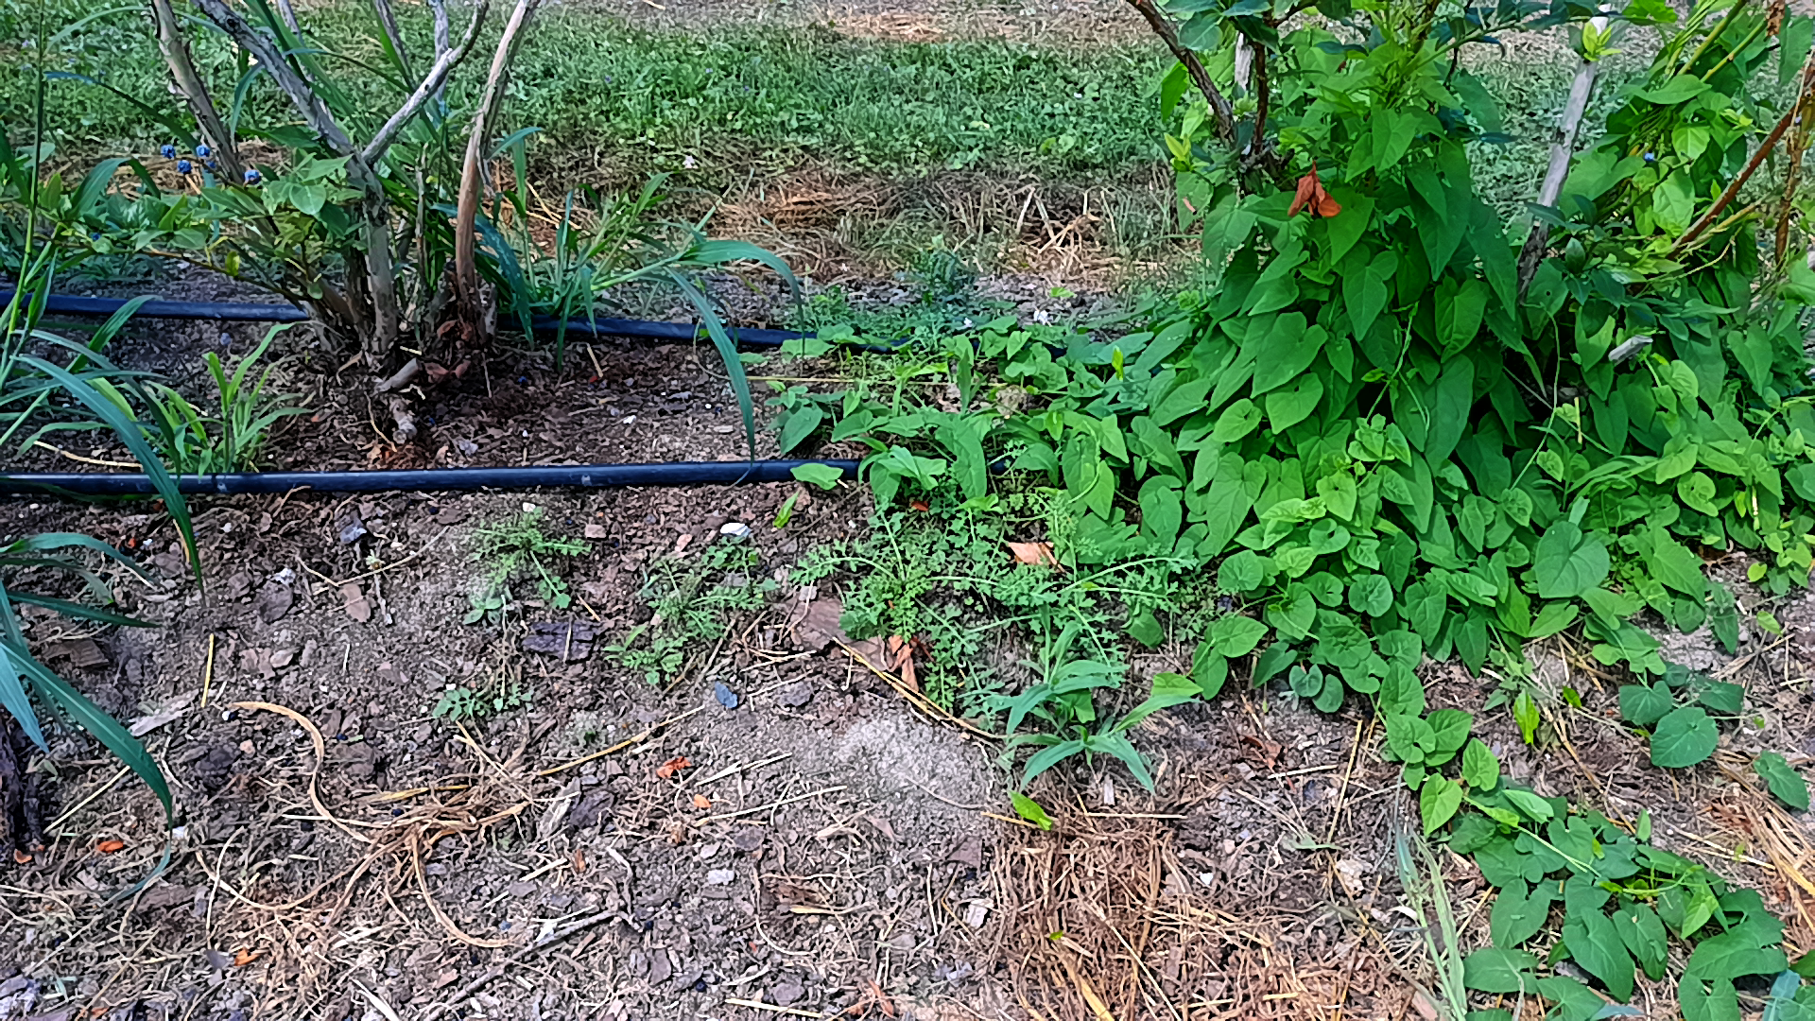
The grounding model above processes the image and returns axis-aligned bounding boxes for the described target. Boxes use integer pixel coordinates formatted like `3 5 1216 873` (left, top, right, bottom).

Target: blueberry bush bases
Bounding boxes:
1143 43 1815 594
195 136 543 500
